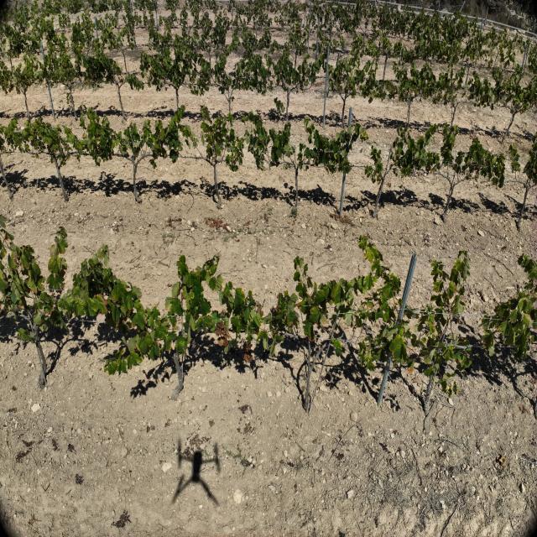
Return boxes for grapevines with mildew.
[251,259,386,419]
[94,251,255,405]
[354,232,537,425]
[0,216,107,399]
